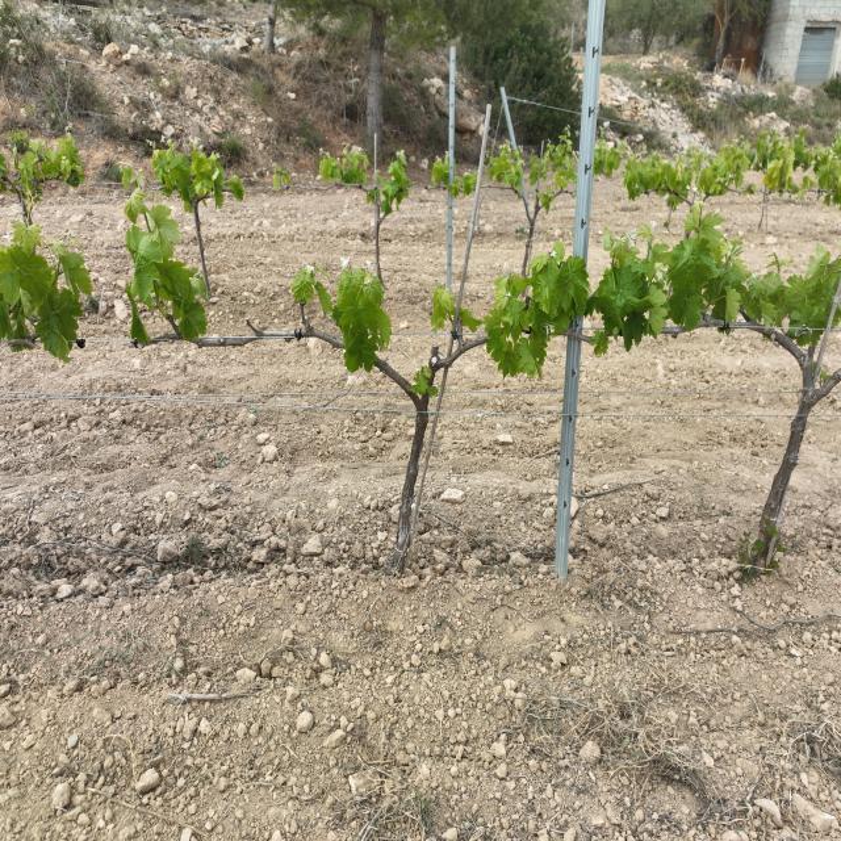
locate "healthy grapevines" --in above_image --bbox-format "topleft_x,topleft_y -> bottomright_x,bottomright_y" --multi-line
122,226 -> 641,604
647,223 -> 841,606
